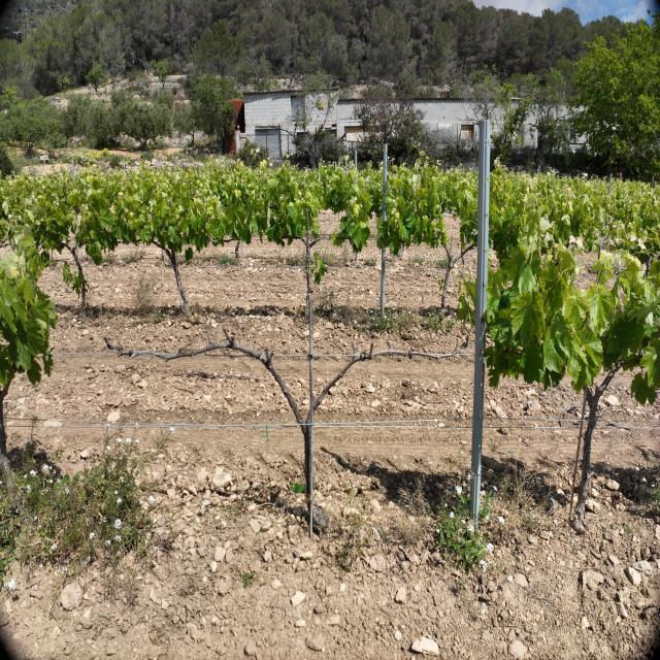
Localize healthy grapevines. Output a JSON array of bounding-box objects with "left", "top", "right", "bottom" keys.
[
  {"left": 0, "top": 238, "right": 67, "bottom": 506},
  {"left": 456, "top": 223, "right": 660, "bottom": 544}
]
